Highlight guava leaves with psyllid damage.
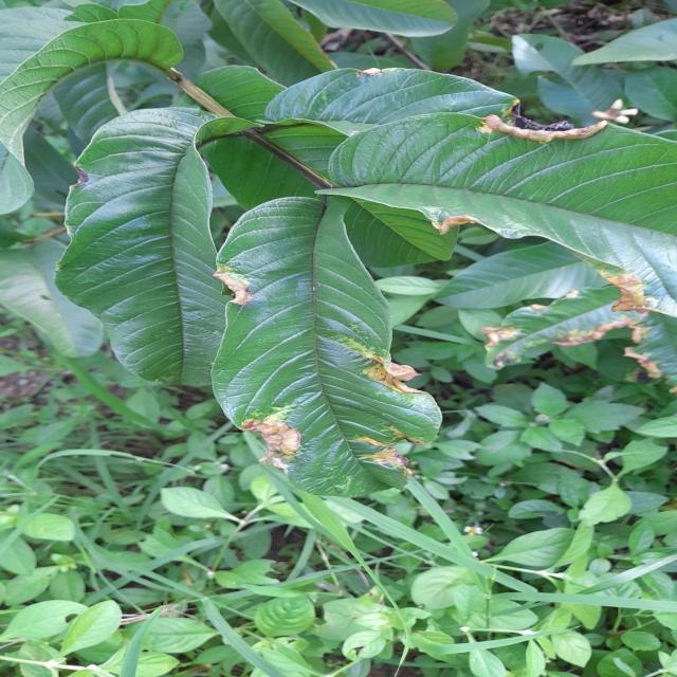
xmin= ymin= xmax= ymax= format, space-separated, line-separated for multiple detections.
xmin=316 ymin=97 xmax=677 ymax=294
xmin=202 ymin=182 xmax=457 ymax=513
